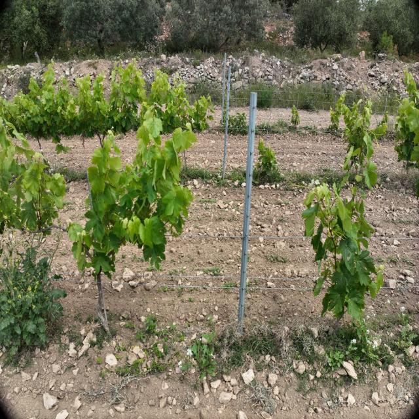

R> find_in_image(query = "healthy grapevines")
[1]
[0,104,206,351]
[302,118,380,348]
